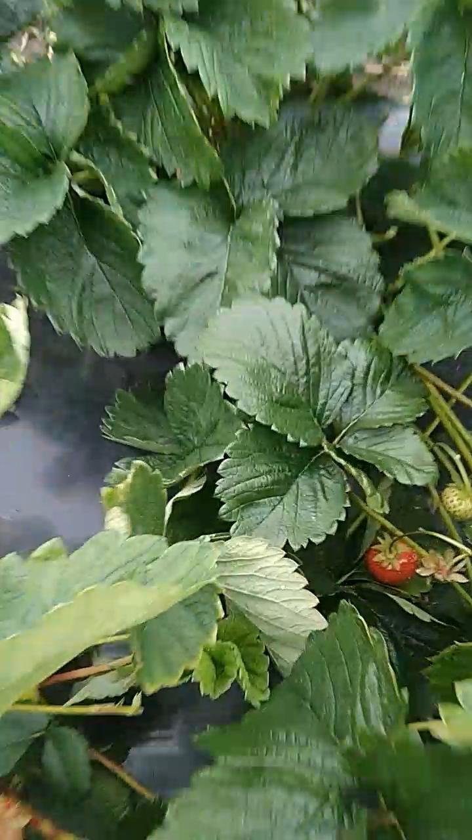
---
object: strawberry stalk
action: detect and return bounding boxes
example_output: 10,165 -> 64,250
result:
379,530 -> 410,563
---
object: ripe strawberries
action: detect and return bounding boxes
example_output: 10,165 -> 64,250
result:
370,530 -> 422,588
438,478 -> 472,526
